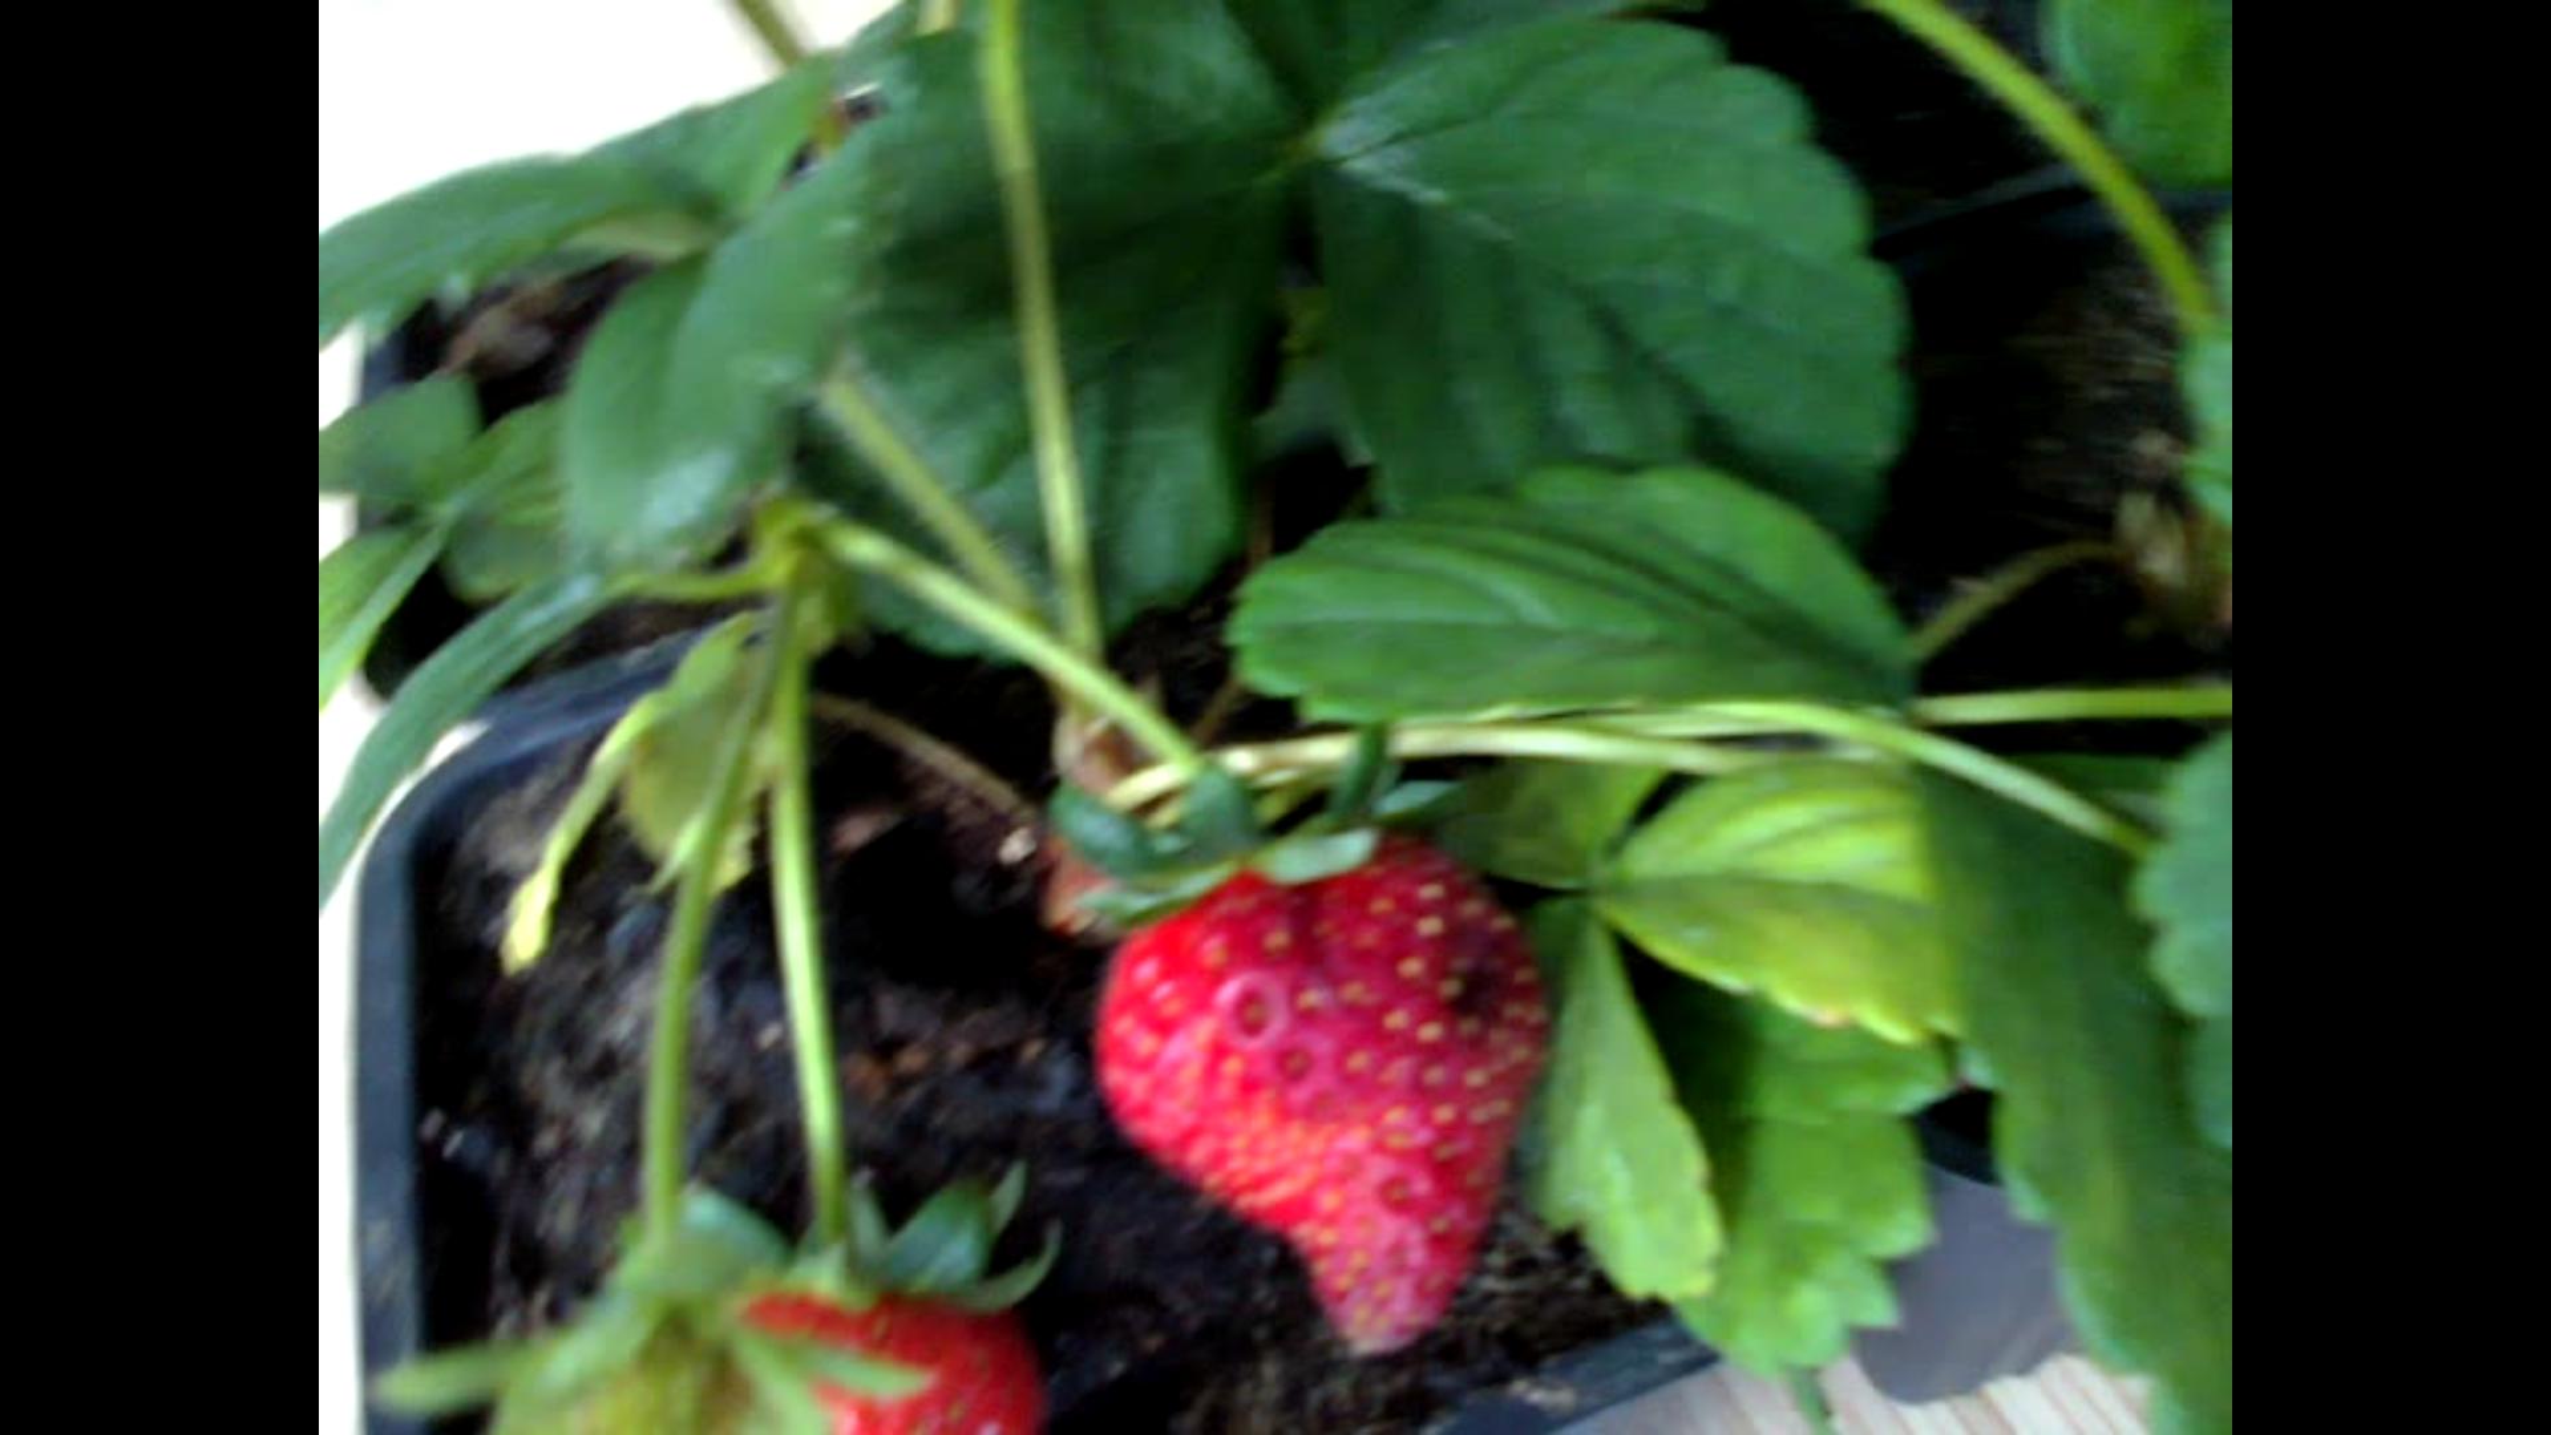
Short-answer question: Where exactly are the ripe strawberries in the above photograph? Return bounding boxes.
[1099,735,1576,1355]
[701,1234,1060,1435]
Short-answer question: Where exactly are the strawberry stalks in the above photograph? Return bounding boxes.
[753,731,840,1303]
[805,561,1314,873]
